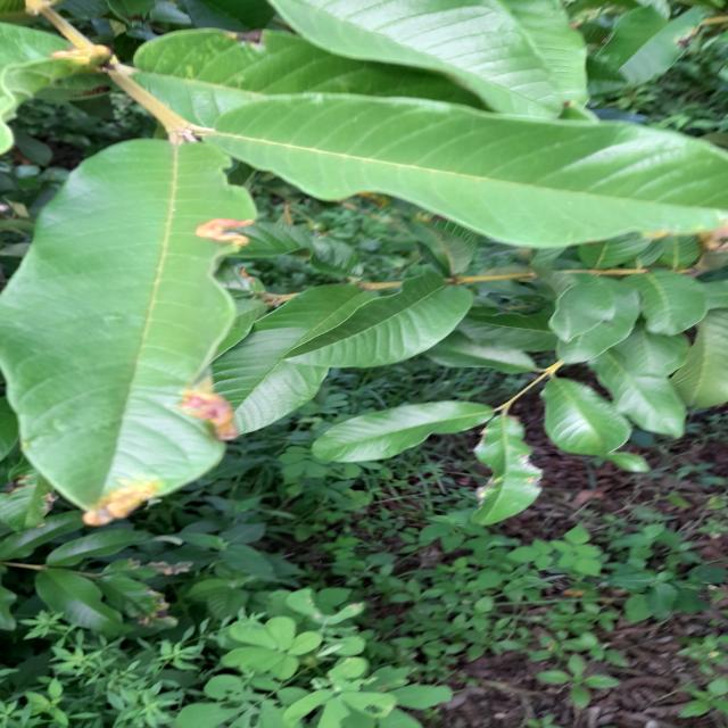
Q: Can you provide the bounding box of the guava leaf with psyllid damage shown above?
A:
[1,131,285,531]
